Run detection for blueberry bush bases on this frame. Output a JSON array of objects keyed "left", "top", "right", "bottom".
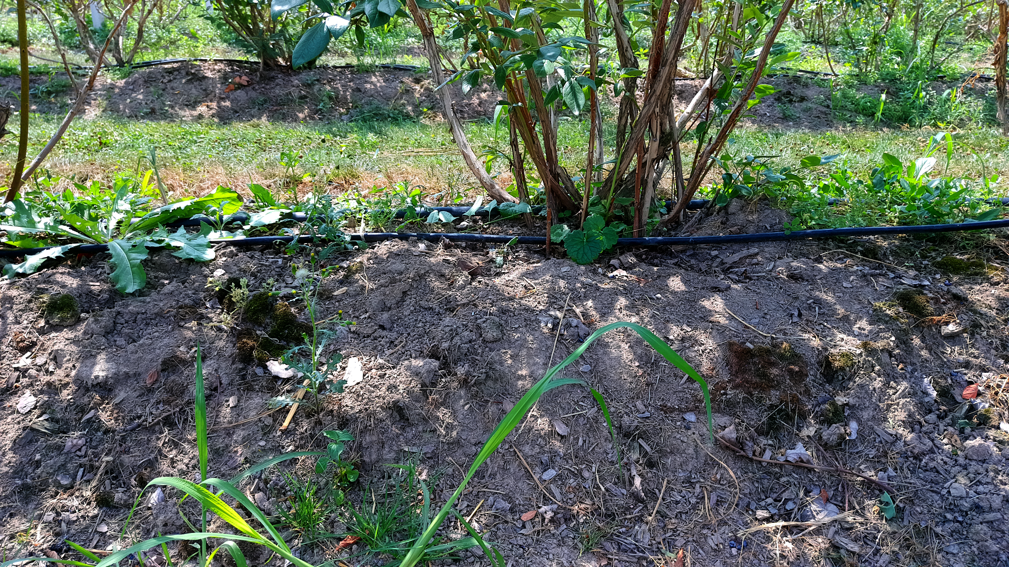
[
  {"left": 460, "top": 123, "right": 755, "bottom": 292},
  {"left": 825, "top": 44, "right": 955, "bottom": 108},
  {"left": 1, "top": 119, "right": 79, "bottom": 310},
  {"left": 90, "top": 36, "right": 151, "bottom": 83},
  {"left": 221, "top": 12, "right": 354, "bottom": 95}
]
